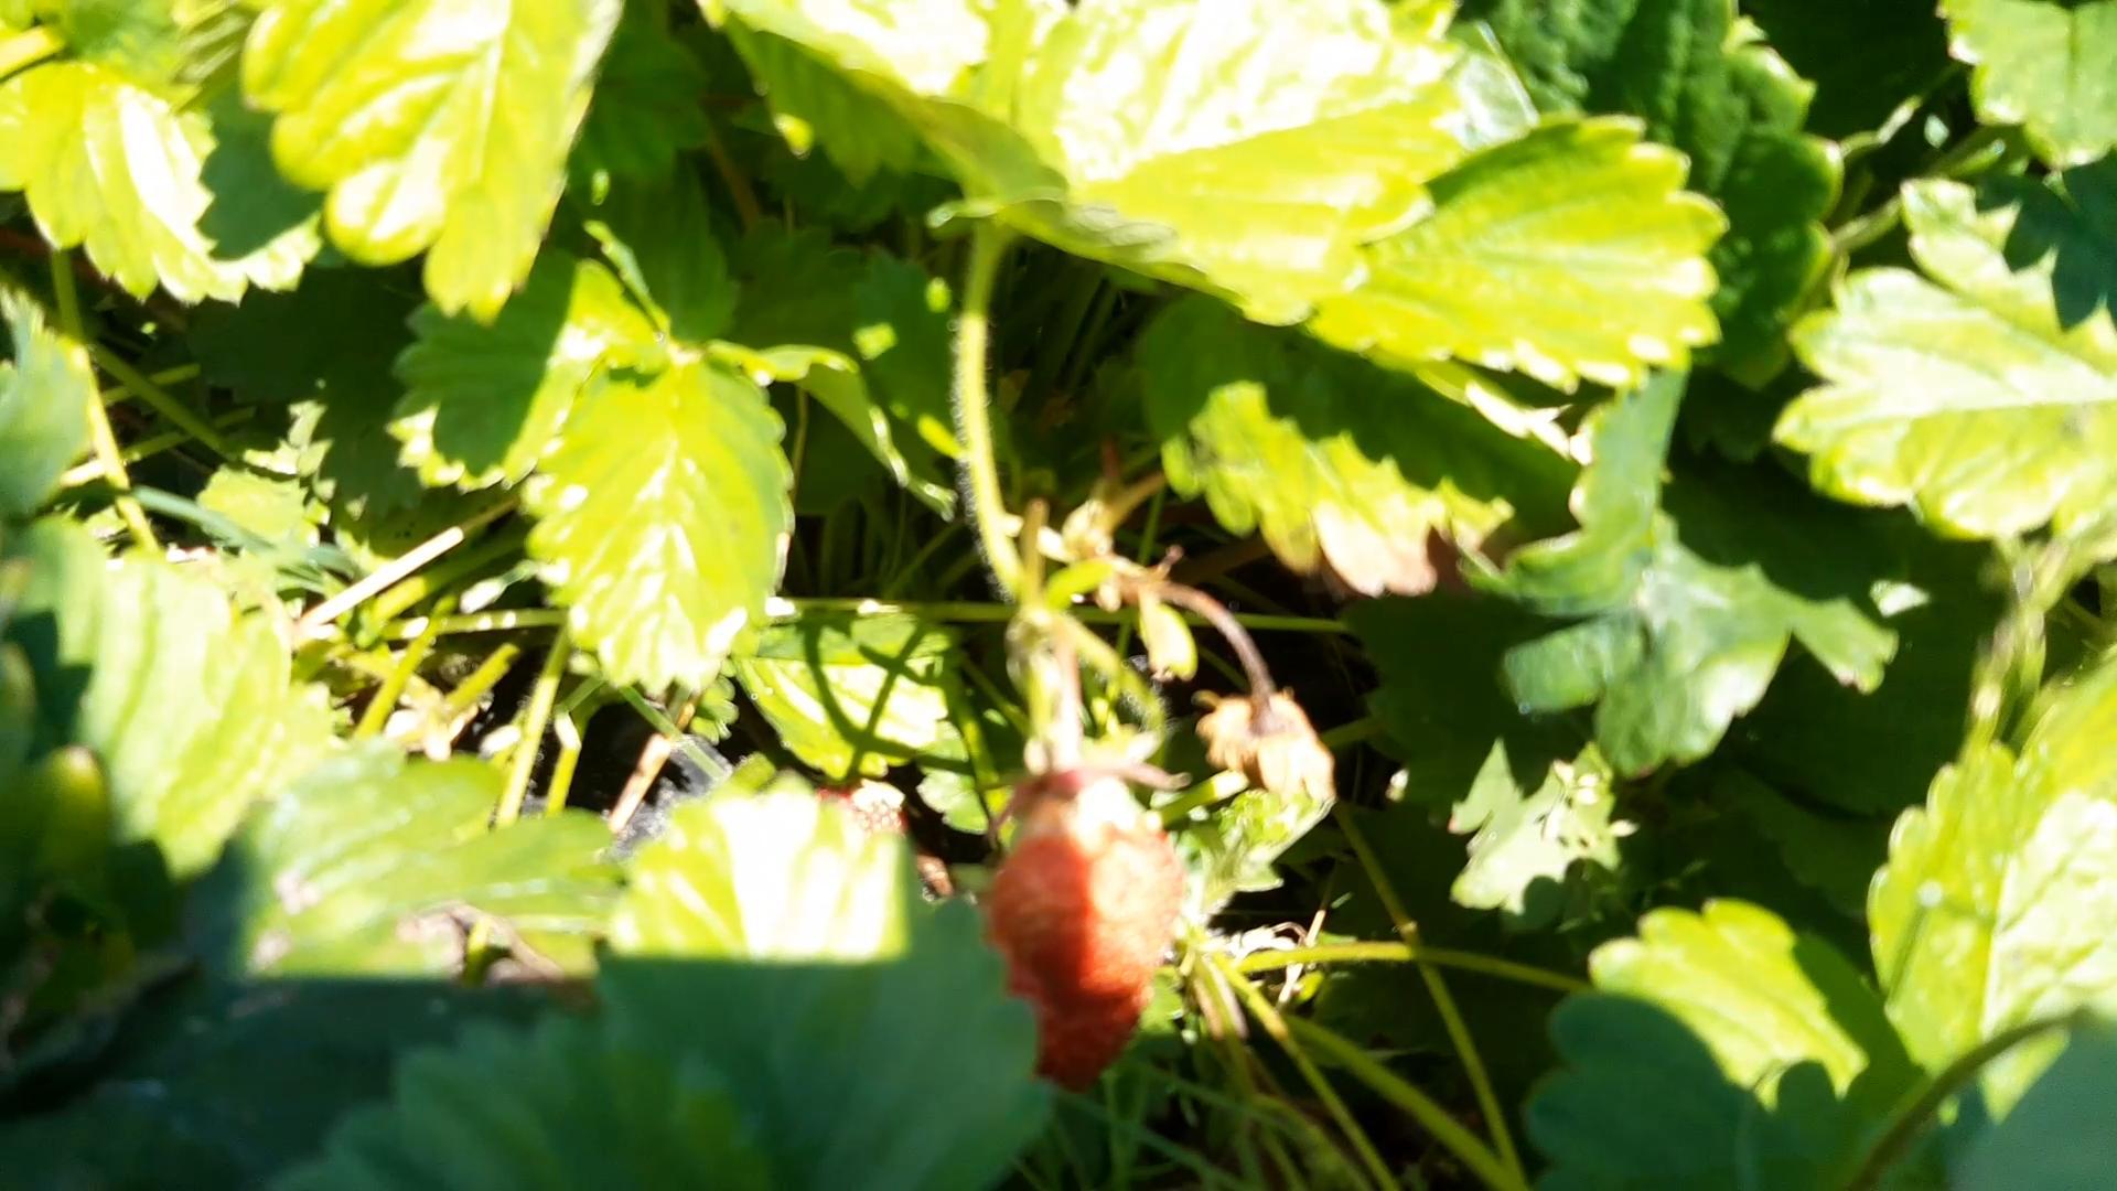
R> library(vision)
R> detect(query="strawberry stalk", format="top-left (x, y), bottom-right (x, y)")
top-left (1009, 665), bottom-right (1087, 797)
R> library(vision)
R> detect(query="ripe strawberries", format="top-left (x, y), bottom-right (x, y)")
top-left (796, 774), bottom-right (958, 914)
top-left (1008, 944), bottom-right (1136, 1106)
top-left (988, 776), bottom-right (1185, 1027)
